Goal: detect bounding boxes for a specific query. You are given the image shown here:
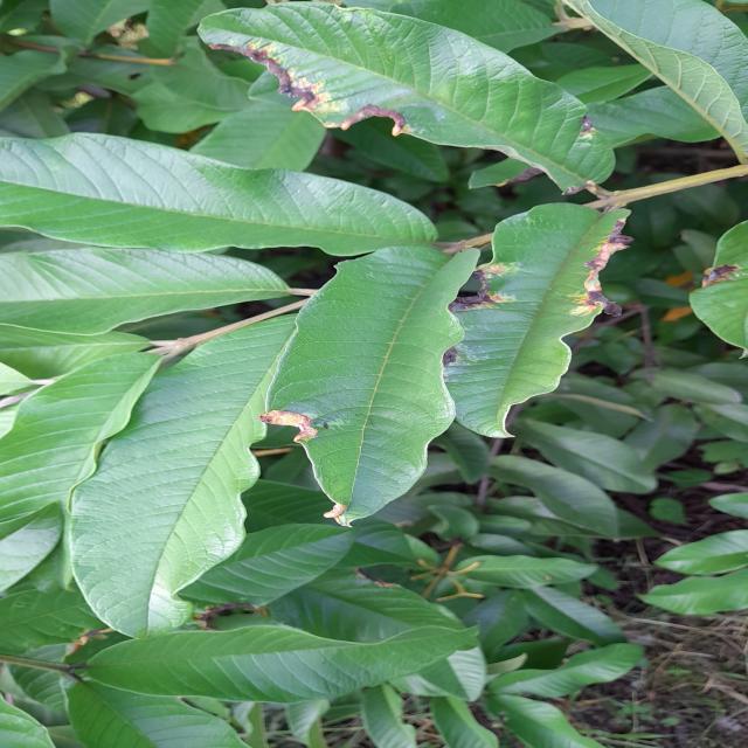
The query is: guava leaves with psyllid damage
[187,0,617,202]
[250,227,494,529]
